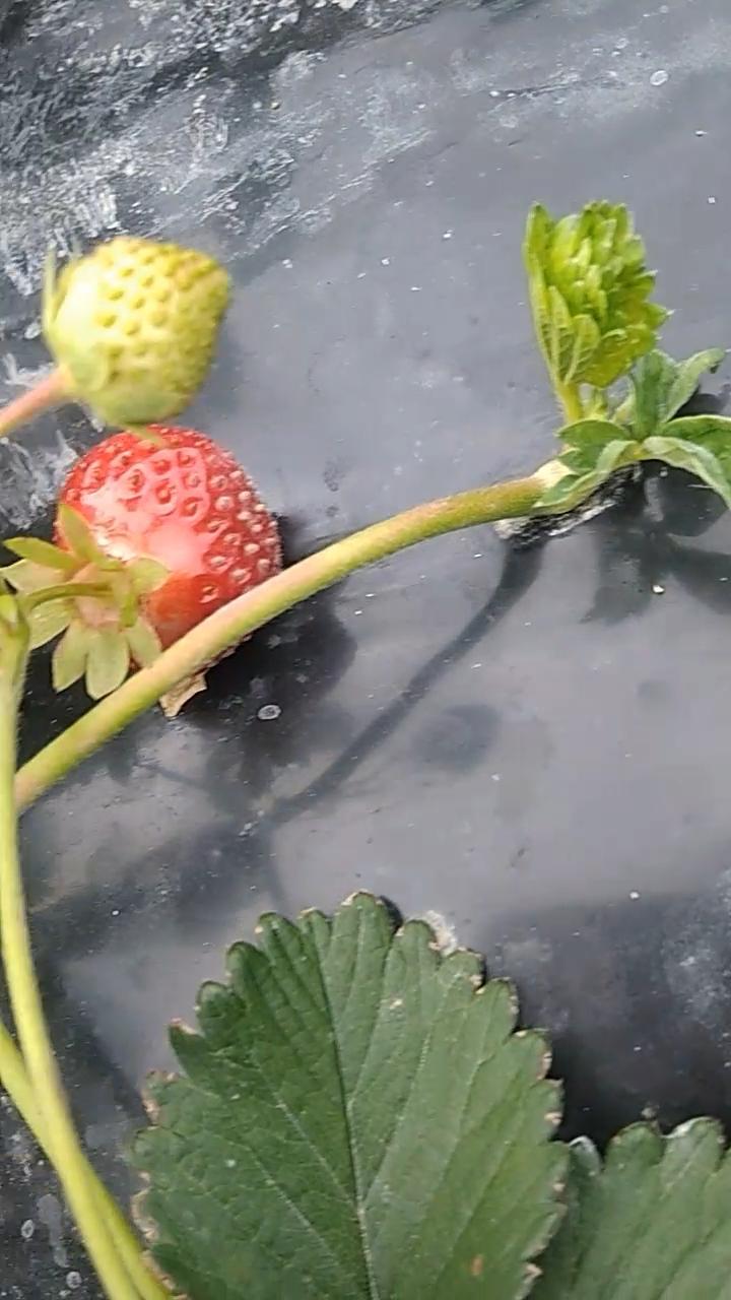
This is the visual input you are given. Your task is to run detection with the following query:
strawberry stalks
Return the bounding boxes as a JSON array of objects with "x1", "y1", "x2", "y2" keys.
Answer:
[
  {"x1": 0, "y1": 551, "x2": 154, "y2": 648},
  {"x1": 4, "y1": 317, "x2": 101, "y2": 436}
]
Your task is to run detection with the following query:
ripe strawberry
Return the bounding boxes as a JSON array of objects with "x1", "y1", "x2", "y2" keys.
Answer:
[{"x1": 50, "y1": 429, "x2": 291, "y2": 651}]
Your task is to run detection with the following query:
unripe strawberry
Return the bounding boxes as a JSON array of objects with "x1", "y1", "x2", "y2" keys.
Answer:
[{"x1": 46, "y1": 236, "x2": 236, "y2": 432}]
